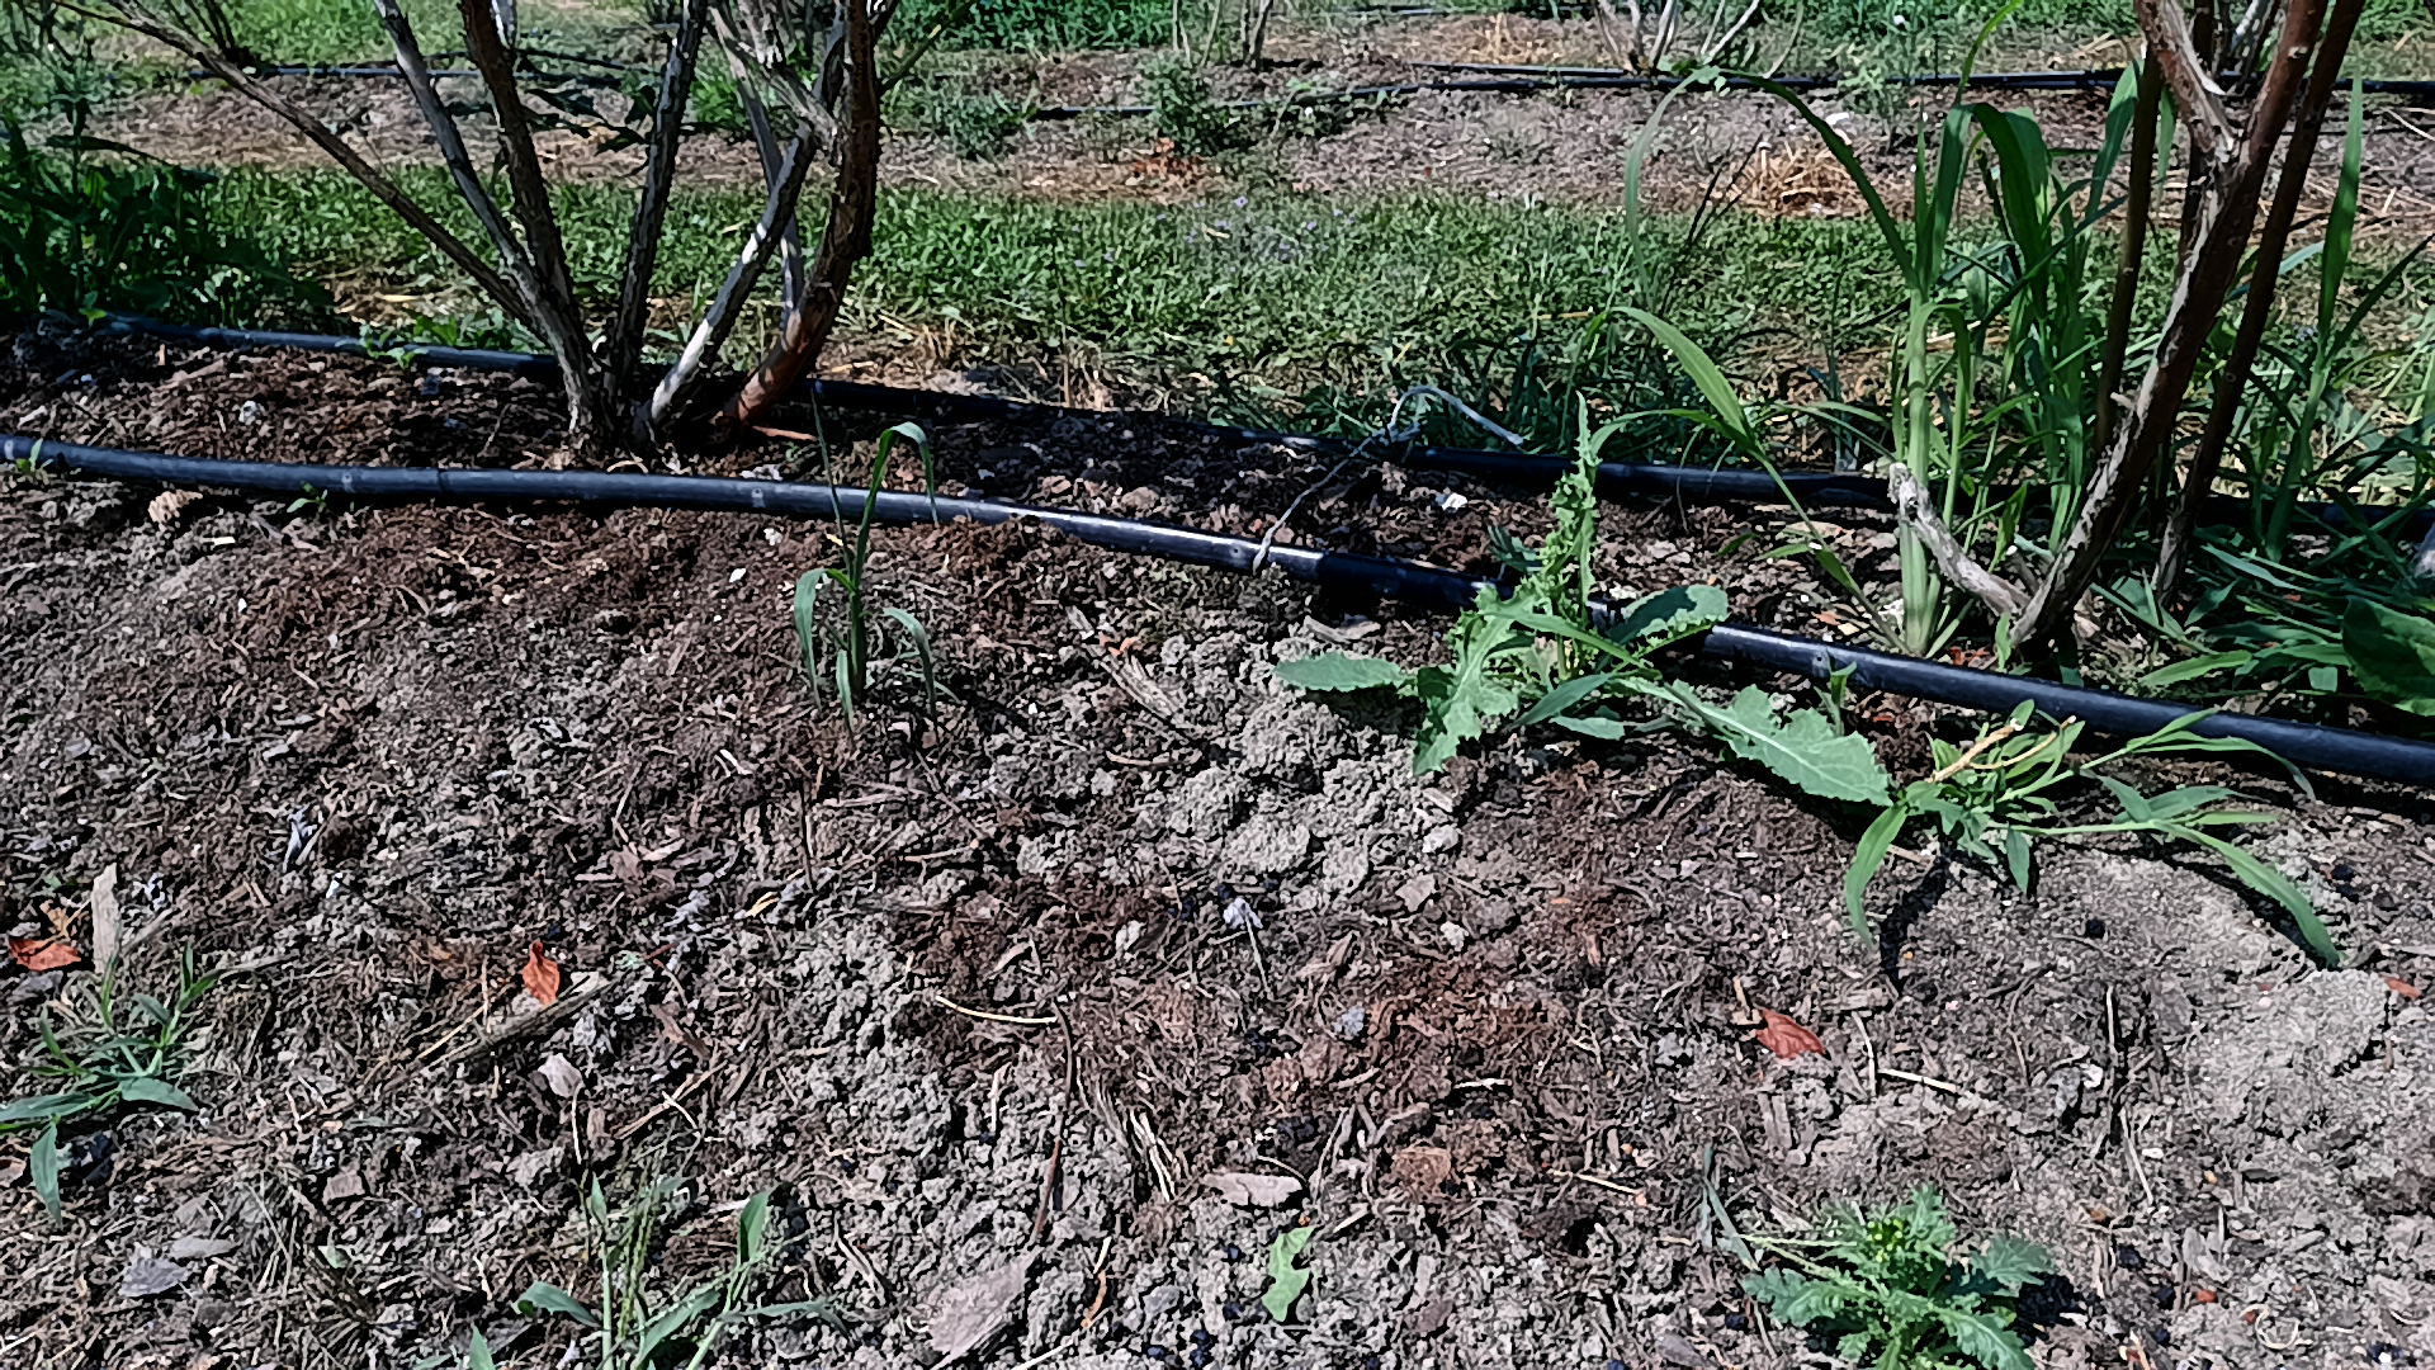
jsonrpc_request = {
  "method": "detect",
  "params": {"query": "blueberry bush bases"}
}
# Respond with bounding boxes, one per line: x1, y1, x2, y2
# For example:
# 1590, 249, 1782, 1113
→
1580, 10, 1732, 109
1883, 318, 2348, 818
416, 198, 908, 529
